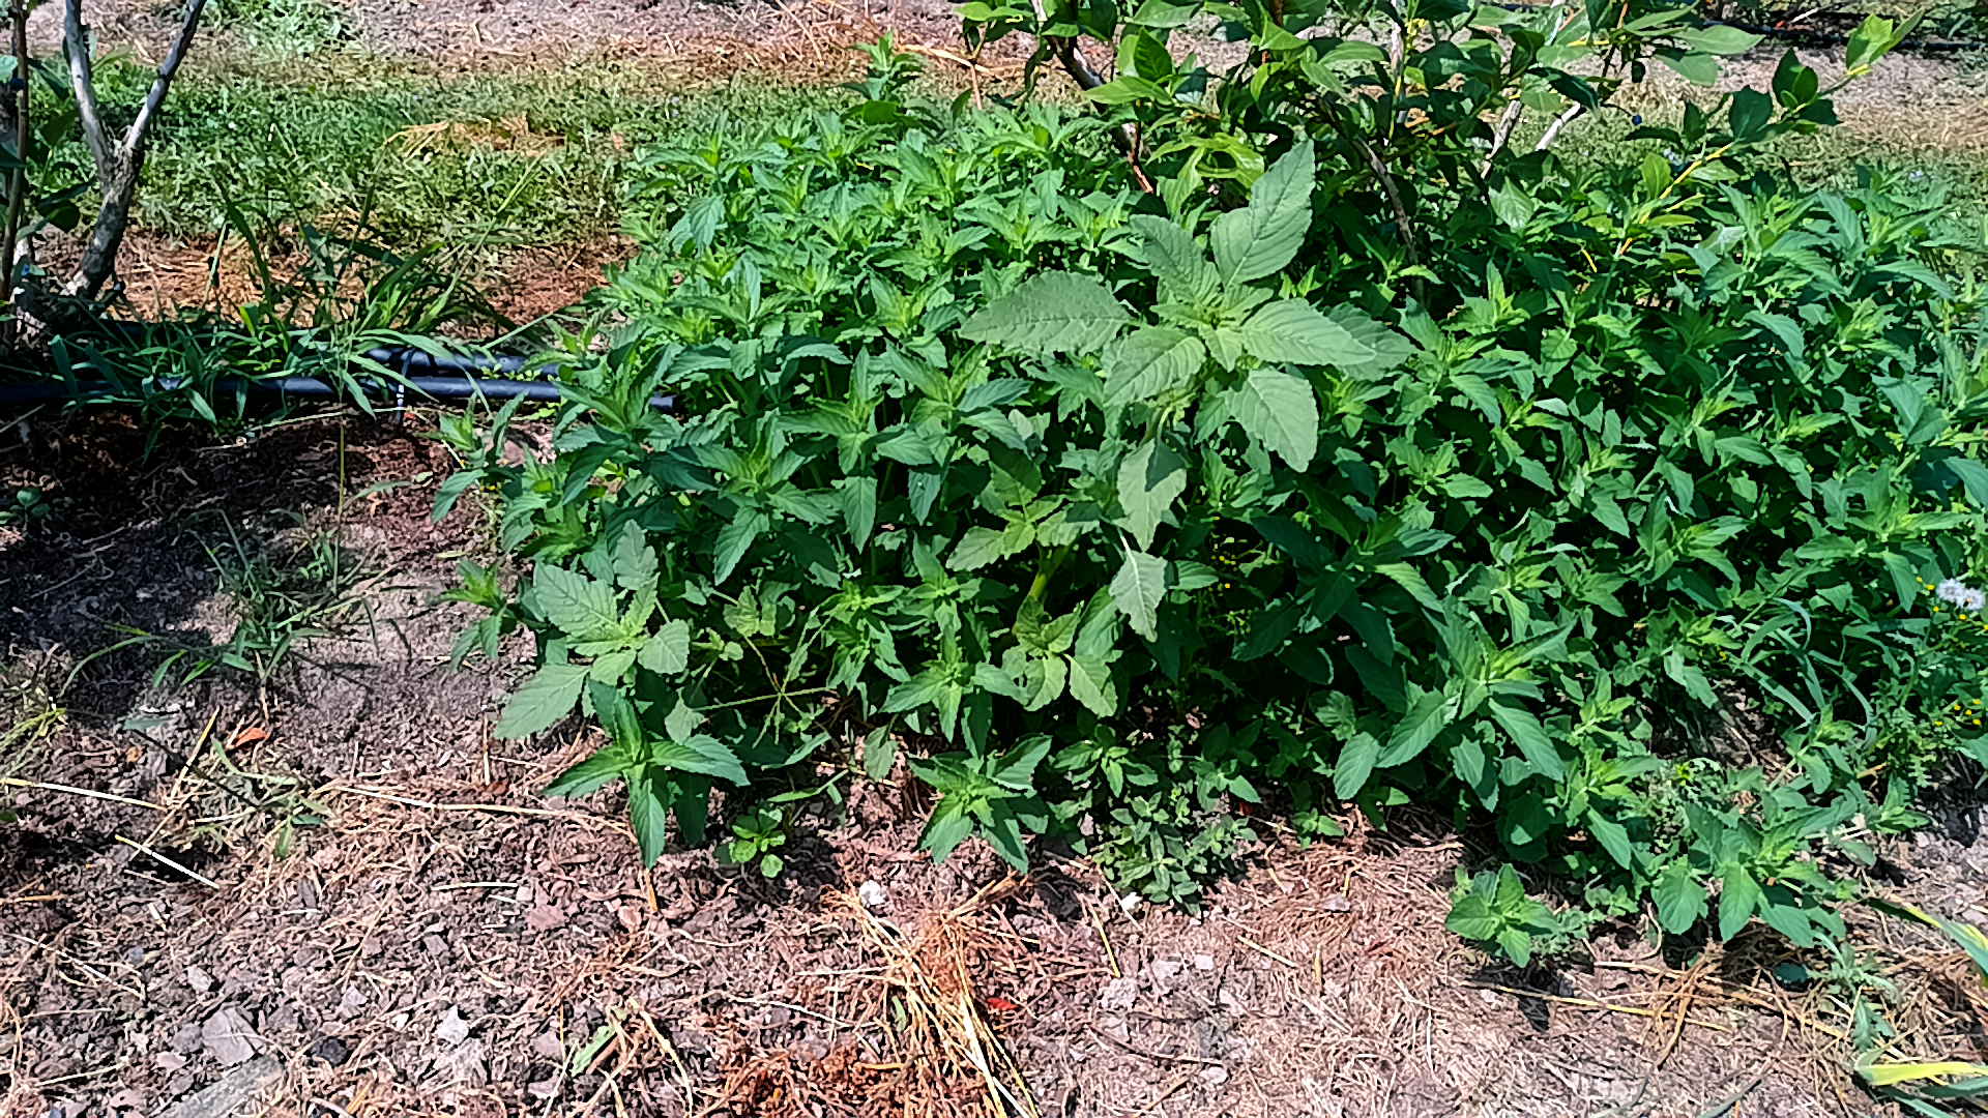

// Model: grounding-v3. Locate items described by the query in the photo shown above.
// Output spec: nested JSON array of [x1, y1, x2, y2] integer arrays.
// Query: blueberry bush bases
[[0, 117, 194, 509], [1036, 70, 1584, 294]]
